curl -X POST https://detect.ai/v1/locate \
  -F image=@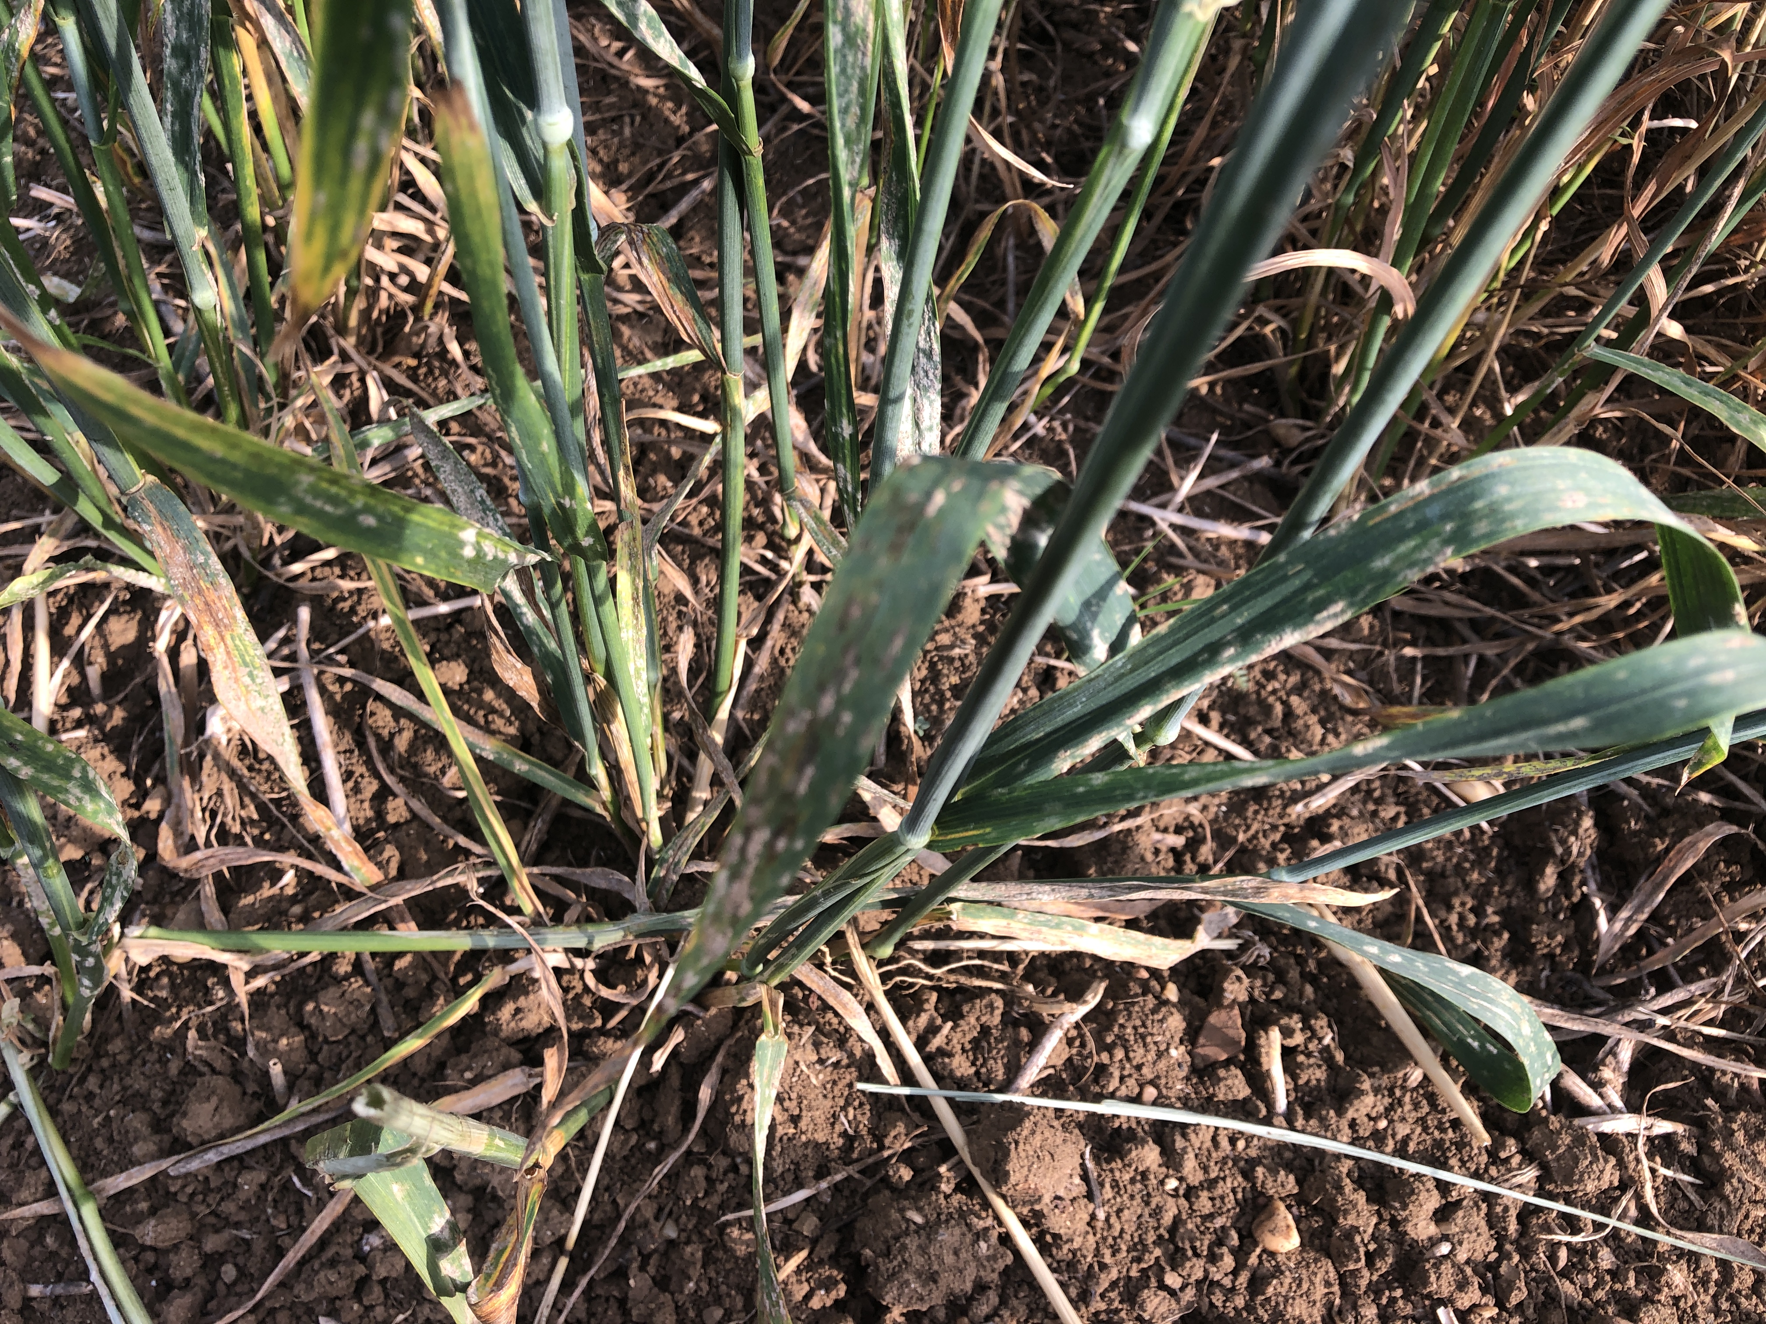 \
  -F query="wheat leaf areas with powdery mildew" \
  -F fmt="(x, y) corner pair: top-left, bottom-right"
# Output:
(1013, 407), (1619, 789)
(1313, 898), (1585, 1030)
(641, 451), (996, 1018)
(212, 436), (529, 589)
(799, 0), (918, 290)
